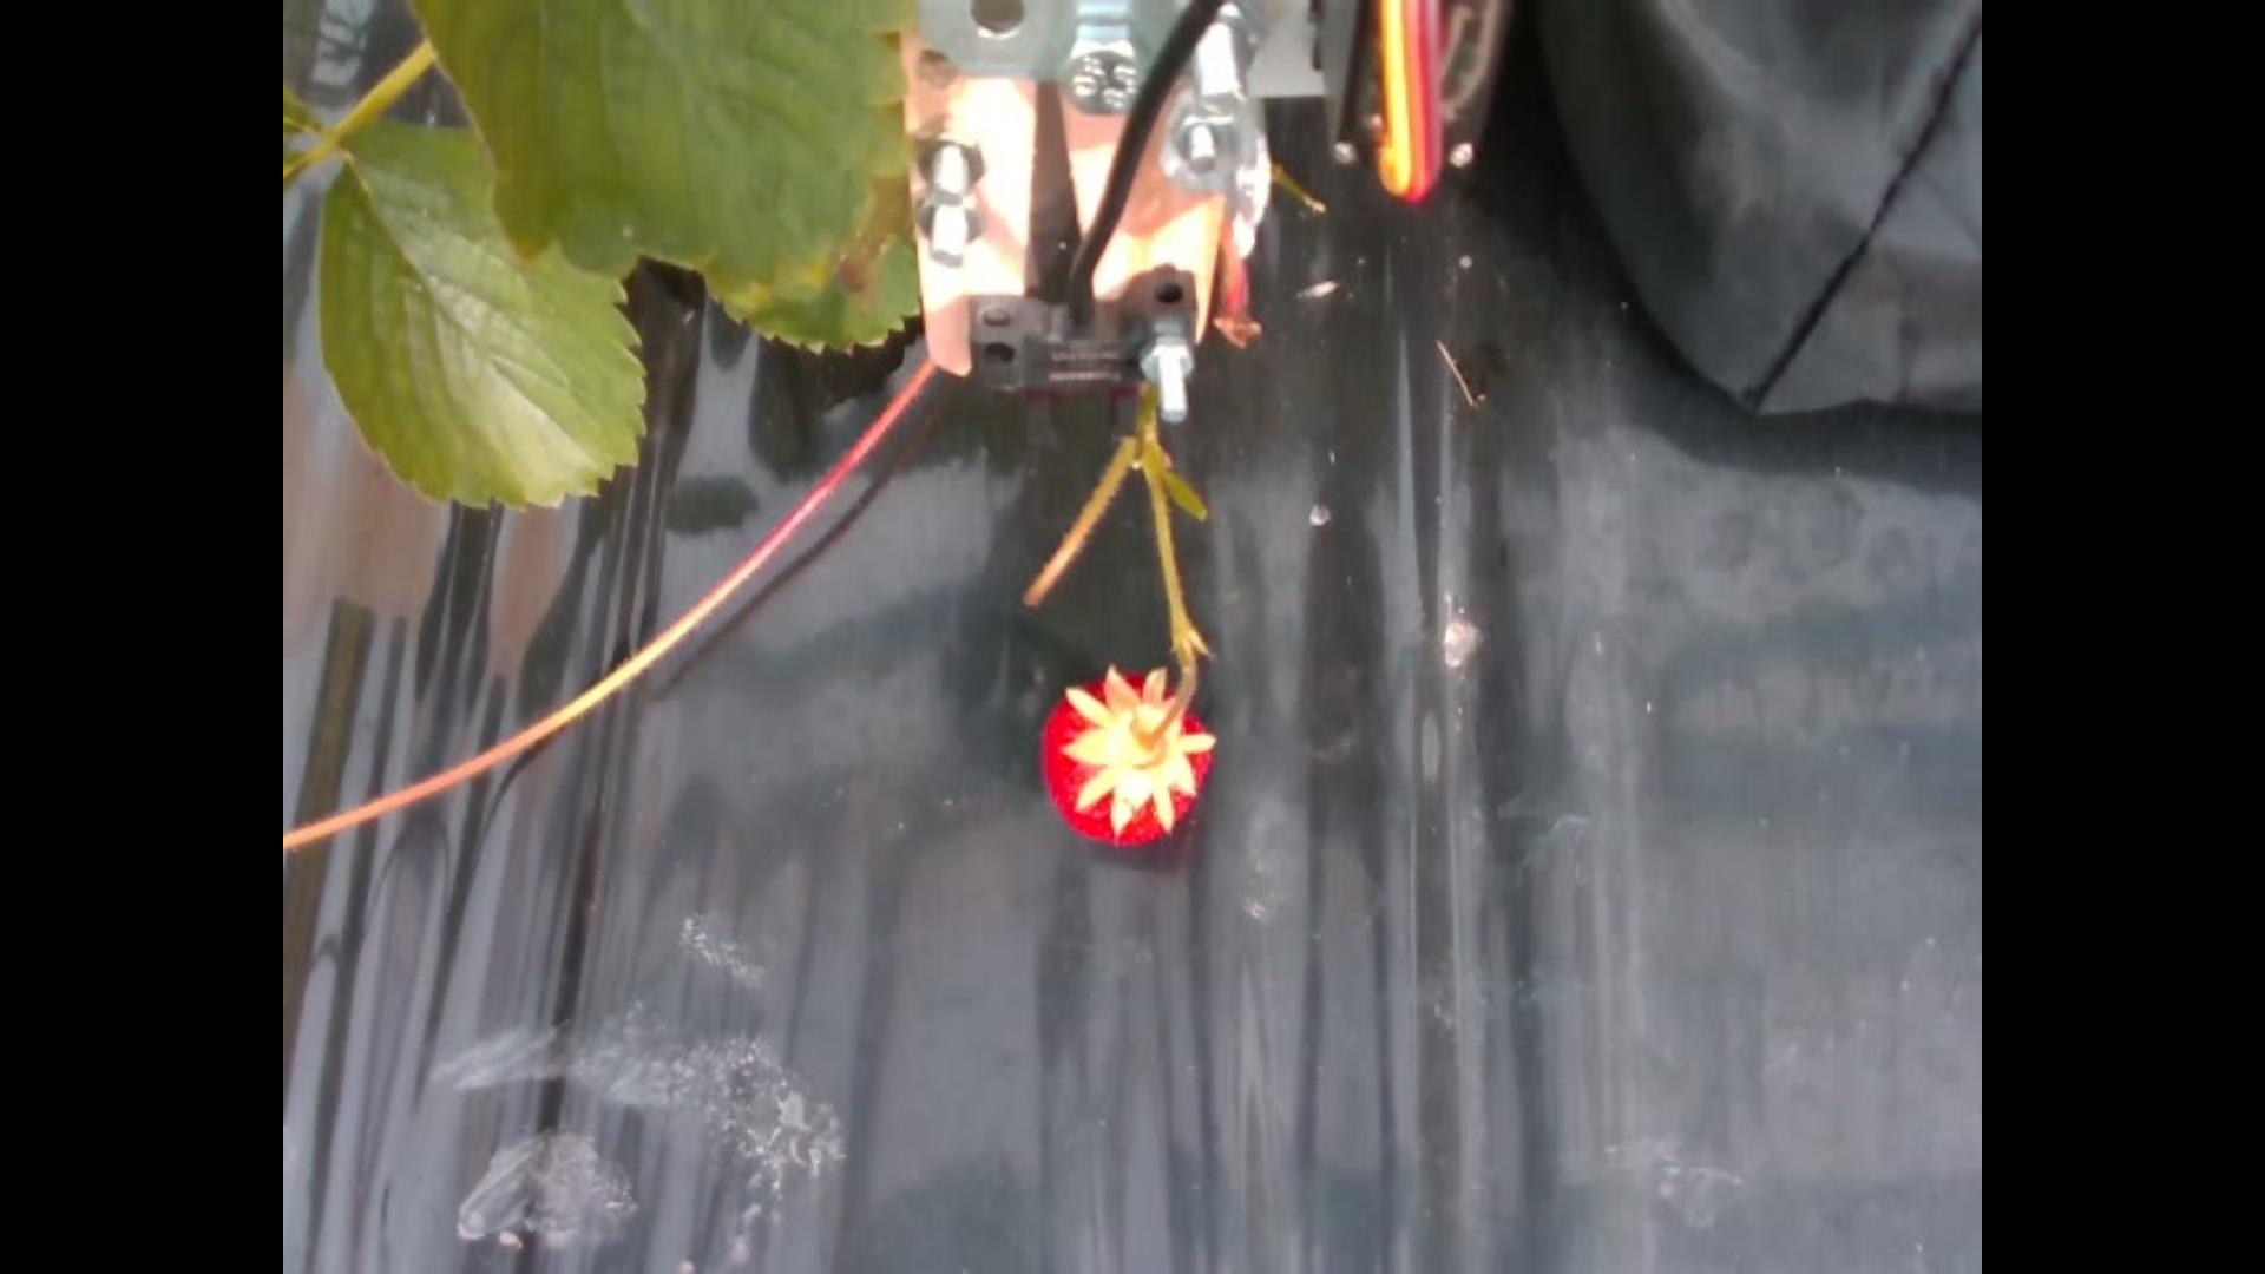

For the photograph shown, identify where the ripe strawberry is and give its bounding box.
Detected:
[1036,639,1232,864]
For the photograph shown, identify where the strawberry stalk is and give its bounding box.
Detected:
[1135,491,1210,764]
